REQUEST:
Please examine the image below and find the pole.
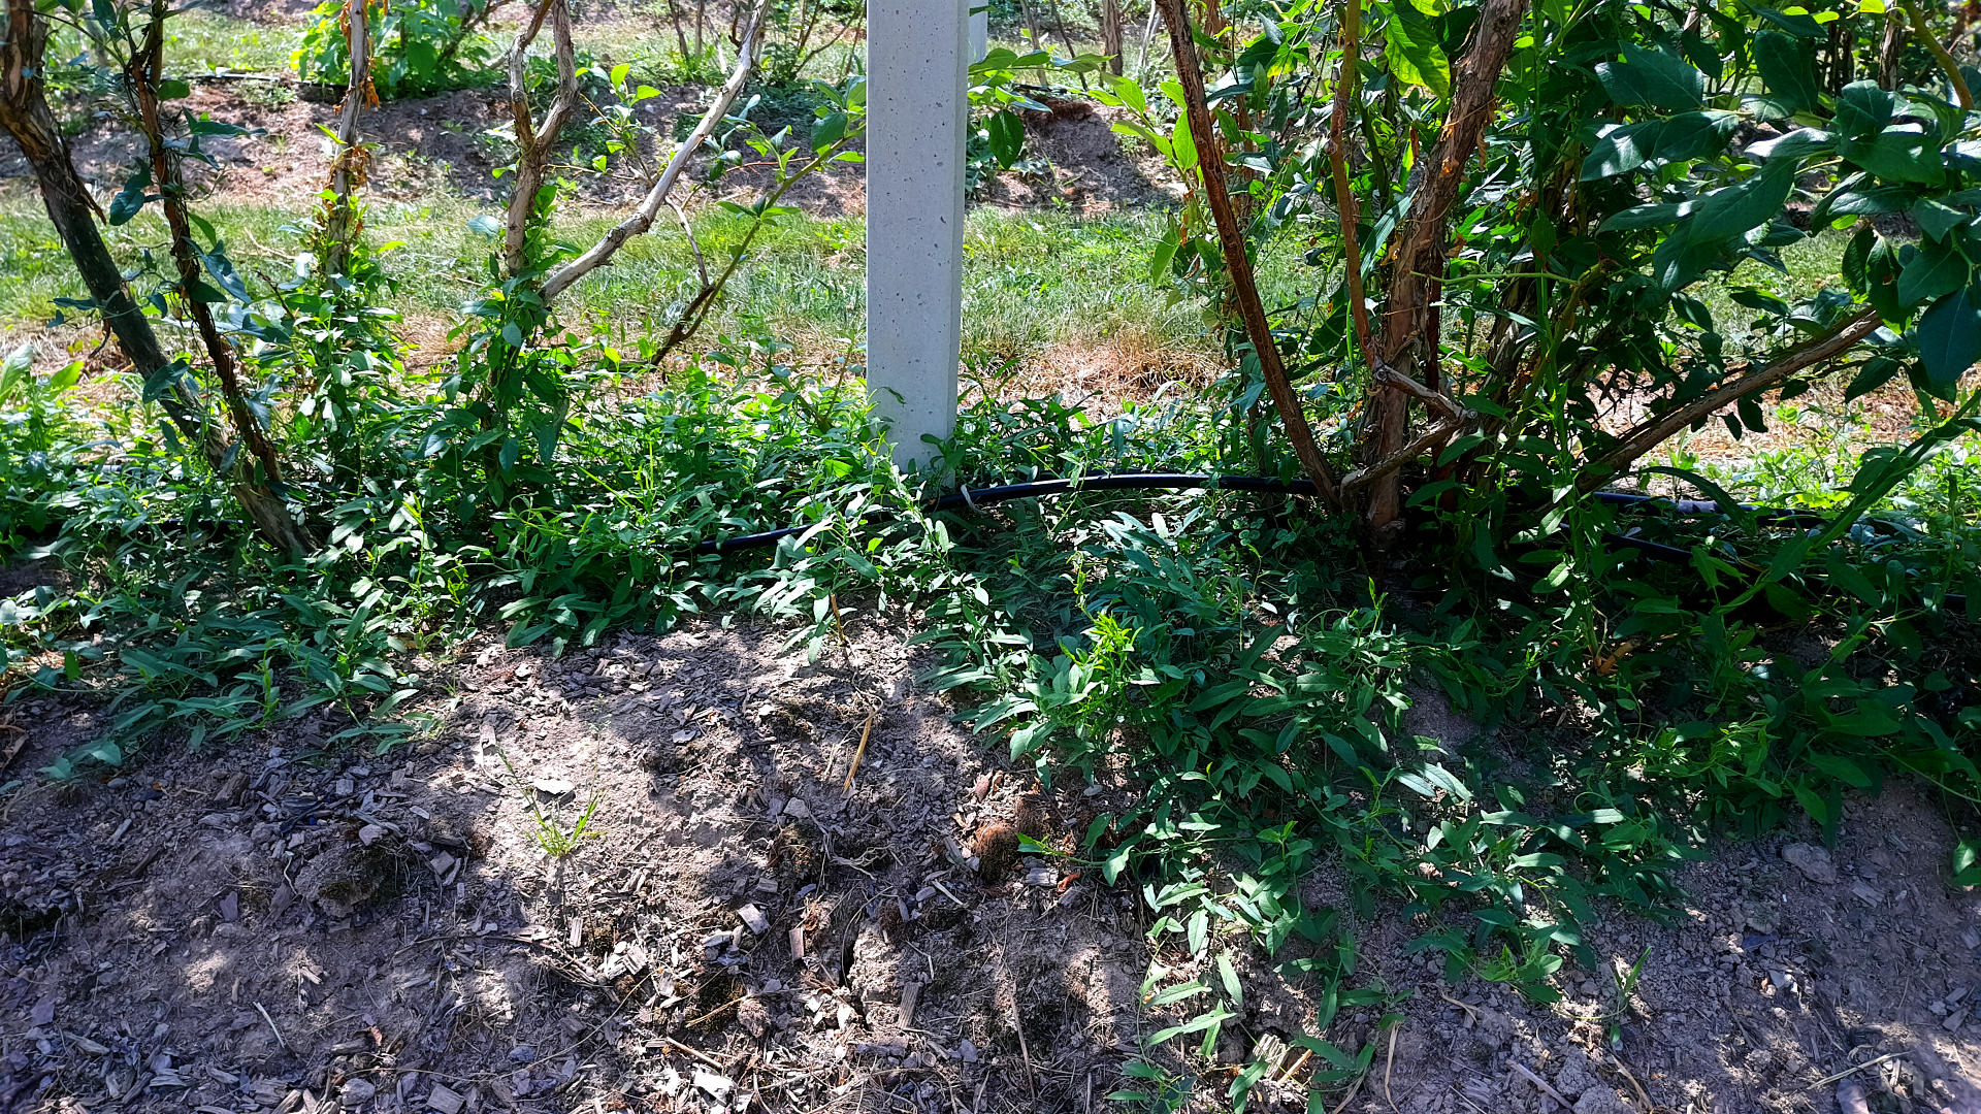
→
[834,39,1004,474]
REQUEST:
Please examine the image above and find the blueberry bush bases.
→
[1211,321,1703,676]
[98,292,624,674]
